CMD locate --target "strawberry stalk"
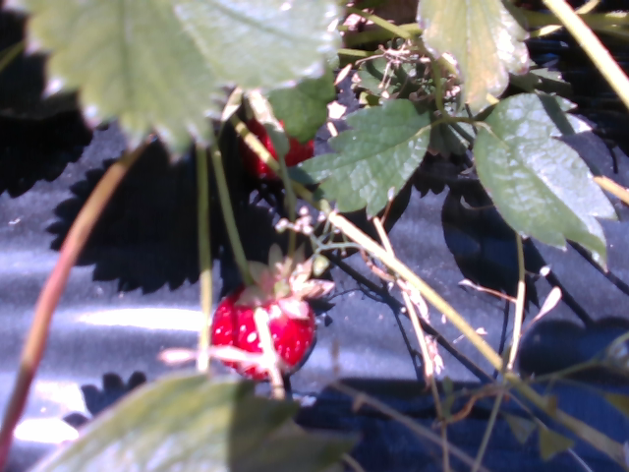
[256,184,310,322]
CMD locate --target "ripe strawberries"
[208,271,325,378]
[238,101,327,178]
